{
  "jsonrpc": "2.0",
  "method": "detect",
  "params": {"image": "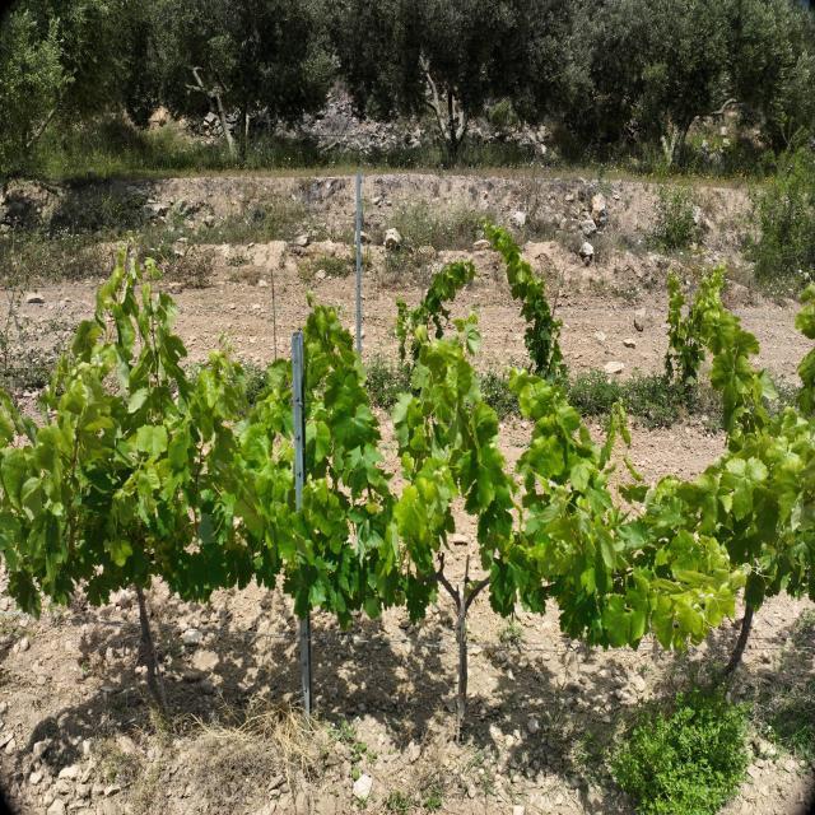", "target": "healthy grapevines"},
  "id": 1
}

[0,283,285,692]
[293,330,606,753]
[611,349,815,741]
